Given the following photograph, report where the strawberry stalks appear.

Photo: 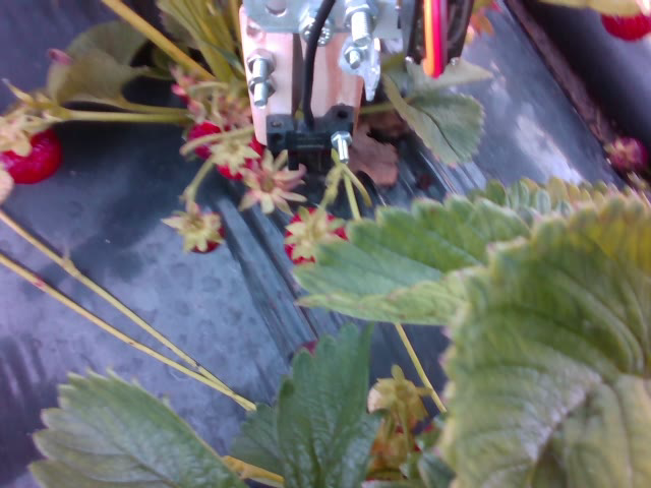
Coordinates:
[181,182,208,231]
[306,180,344,242]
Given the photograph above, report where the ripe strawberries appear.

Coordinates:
[188,212,227,250]
[2,122,60,181]
[217,137,263,175]
[182,119,227,149]
[287,212,351,265]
